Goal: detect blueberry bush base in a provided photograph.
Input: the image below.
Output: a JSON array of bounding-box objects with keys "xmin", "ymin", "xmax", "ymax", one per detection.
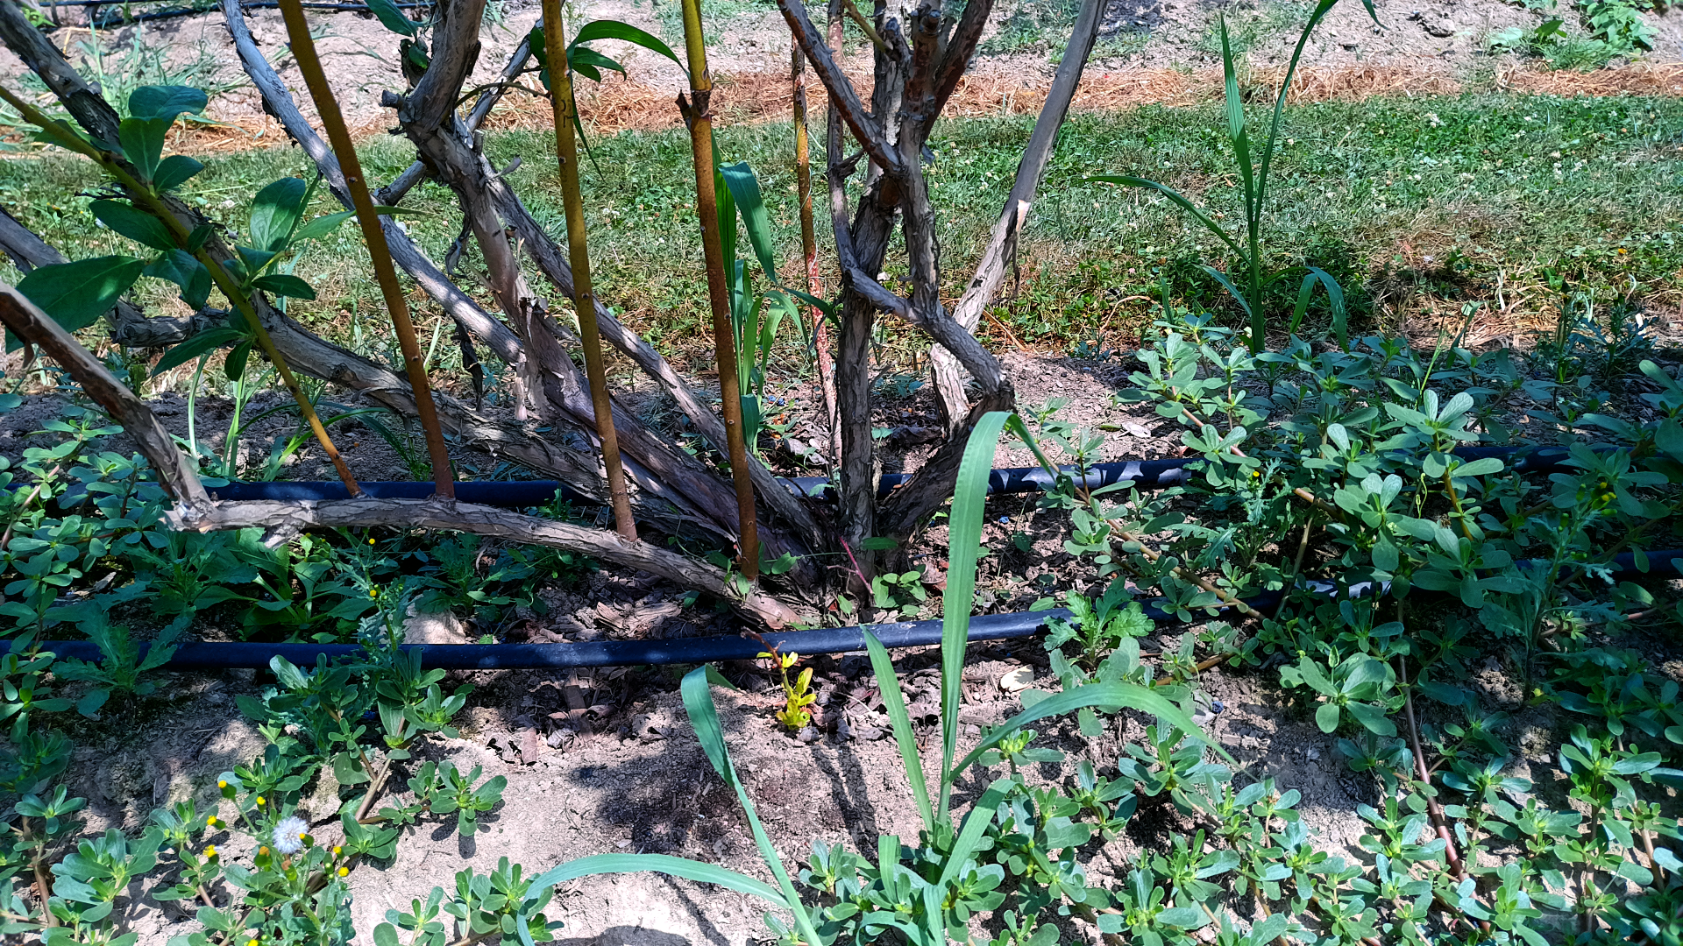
[{"xmin": 488, "ymin": 300, "xmax": 1005, "ymax": 681}]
